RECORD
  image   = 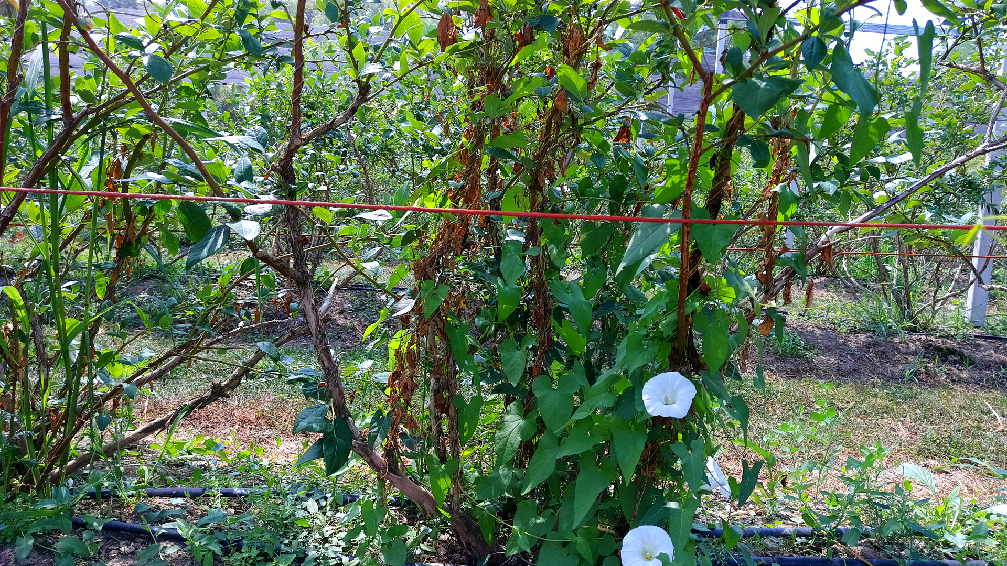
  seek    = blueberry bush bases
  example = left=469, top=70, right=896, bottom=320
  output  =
left=278, top=250, right=791, bottom=564
left=1, top=395, right=127, bottom=548
left=859, top=282, right=957, bottom=351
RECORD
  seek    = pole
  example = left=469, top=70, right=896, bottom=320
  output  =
left=940, top=95, right=1007, bottom=345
